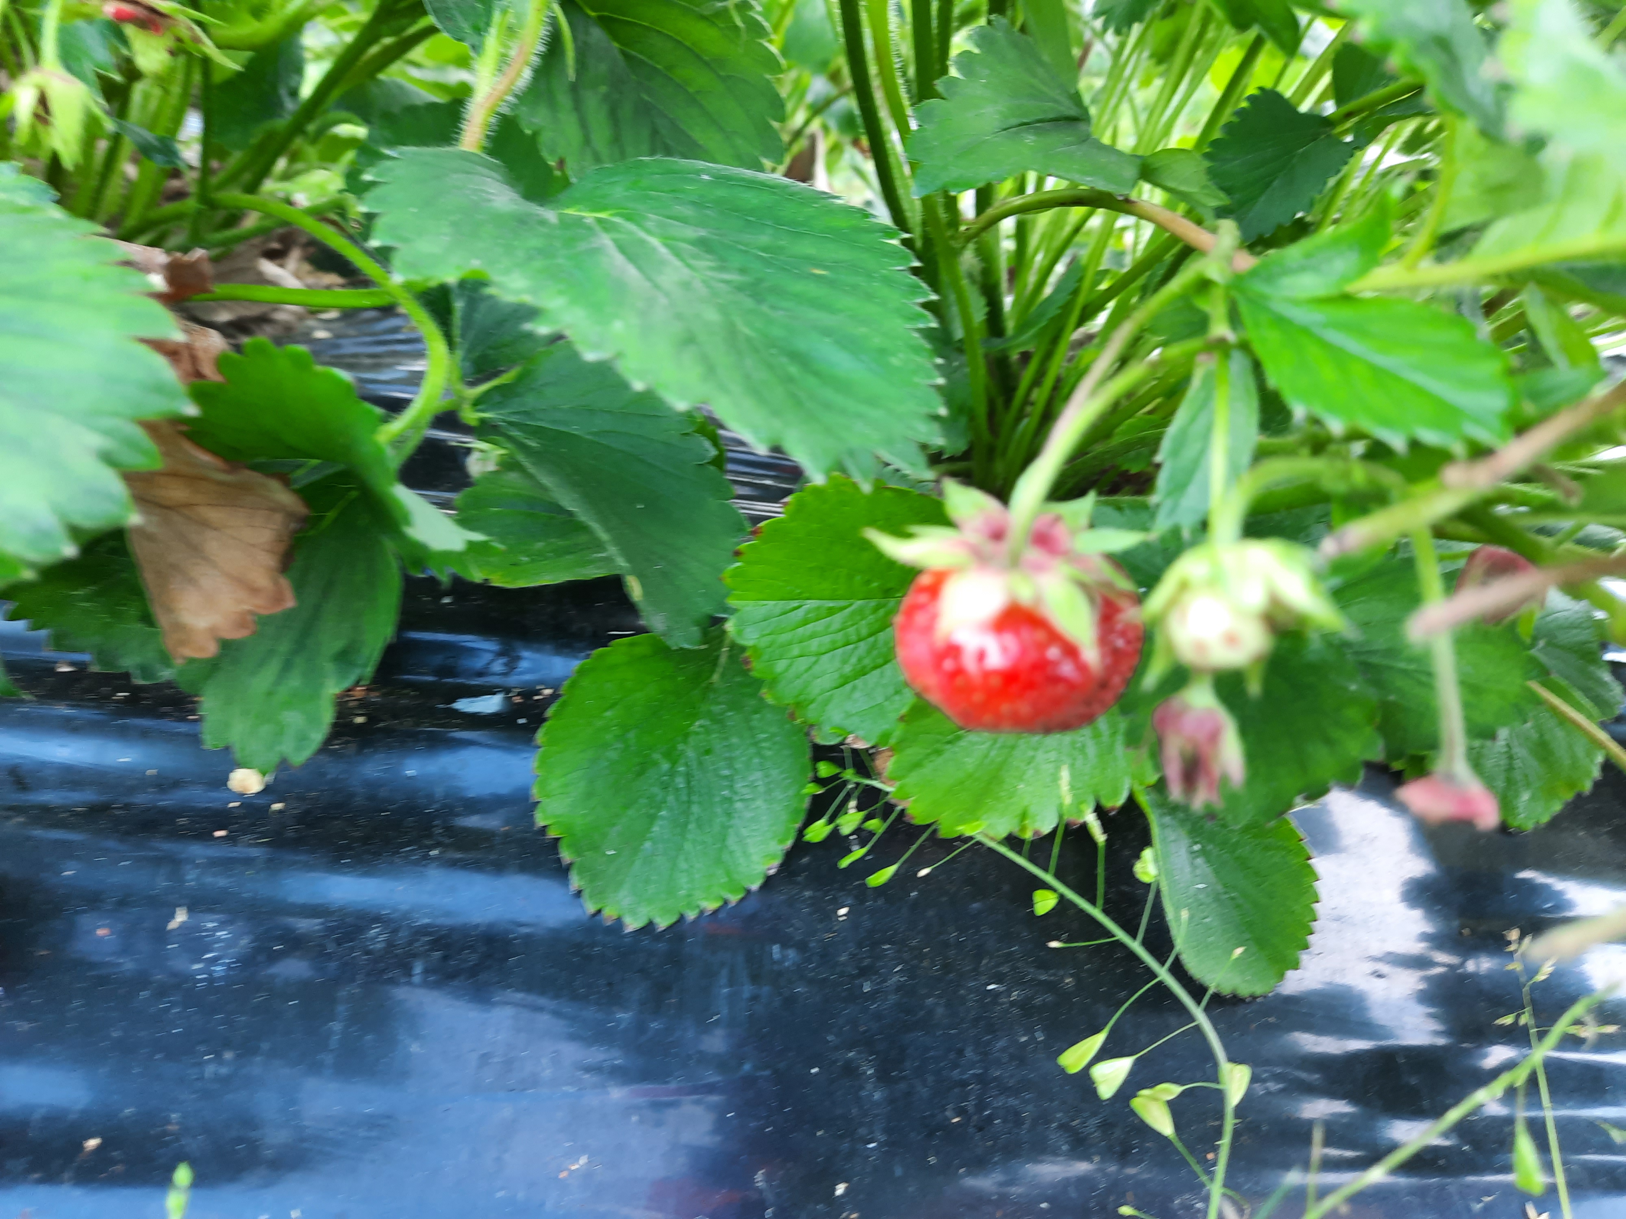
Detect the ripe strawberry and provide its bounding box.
[904,518,1147,734]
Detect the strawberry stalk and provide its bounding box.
[982,322,1171,595]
